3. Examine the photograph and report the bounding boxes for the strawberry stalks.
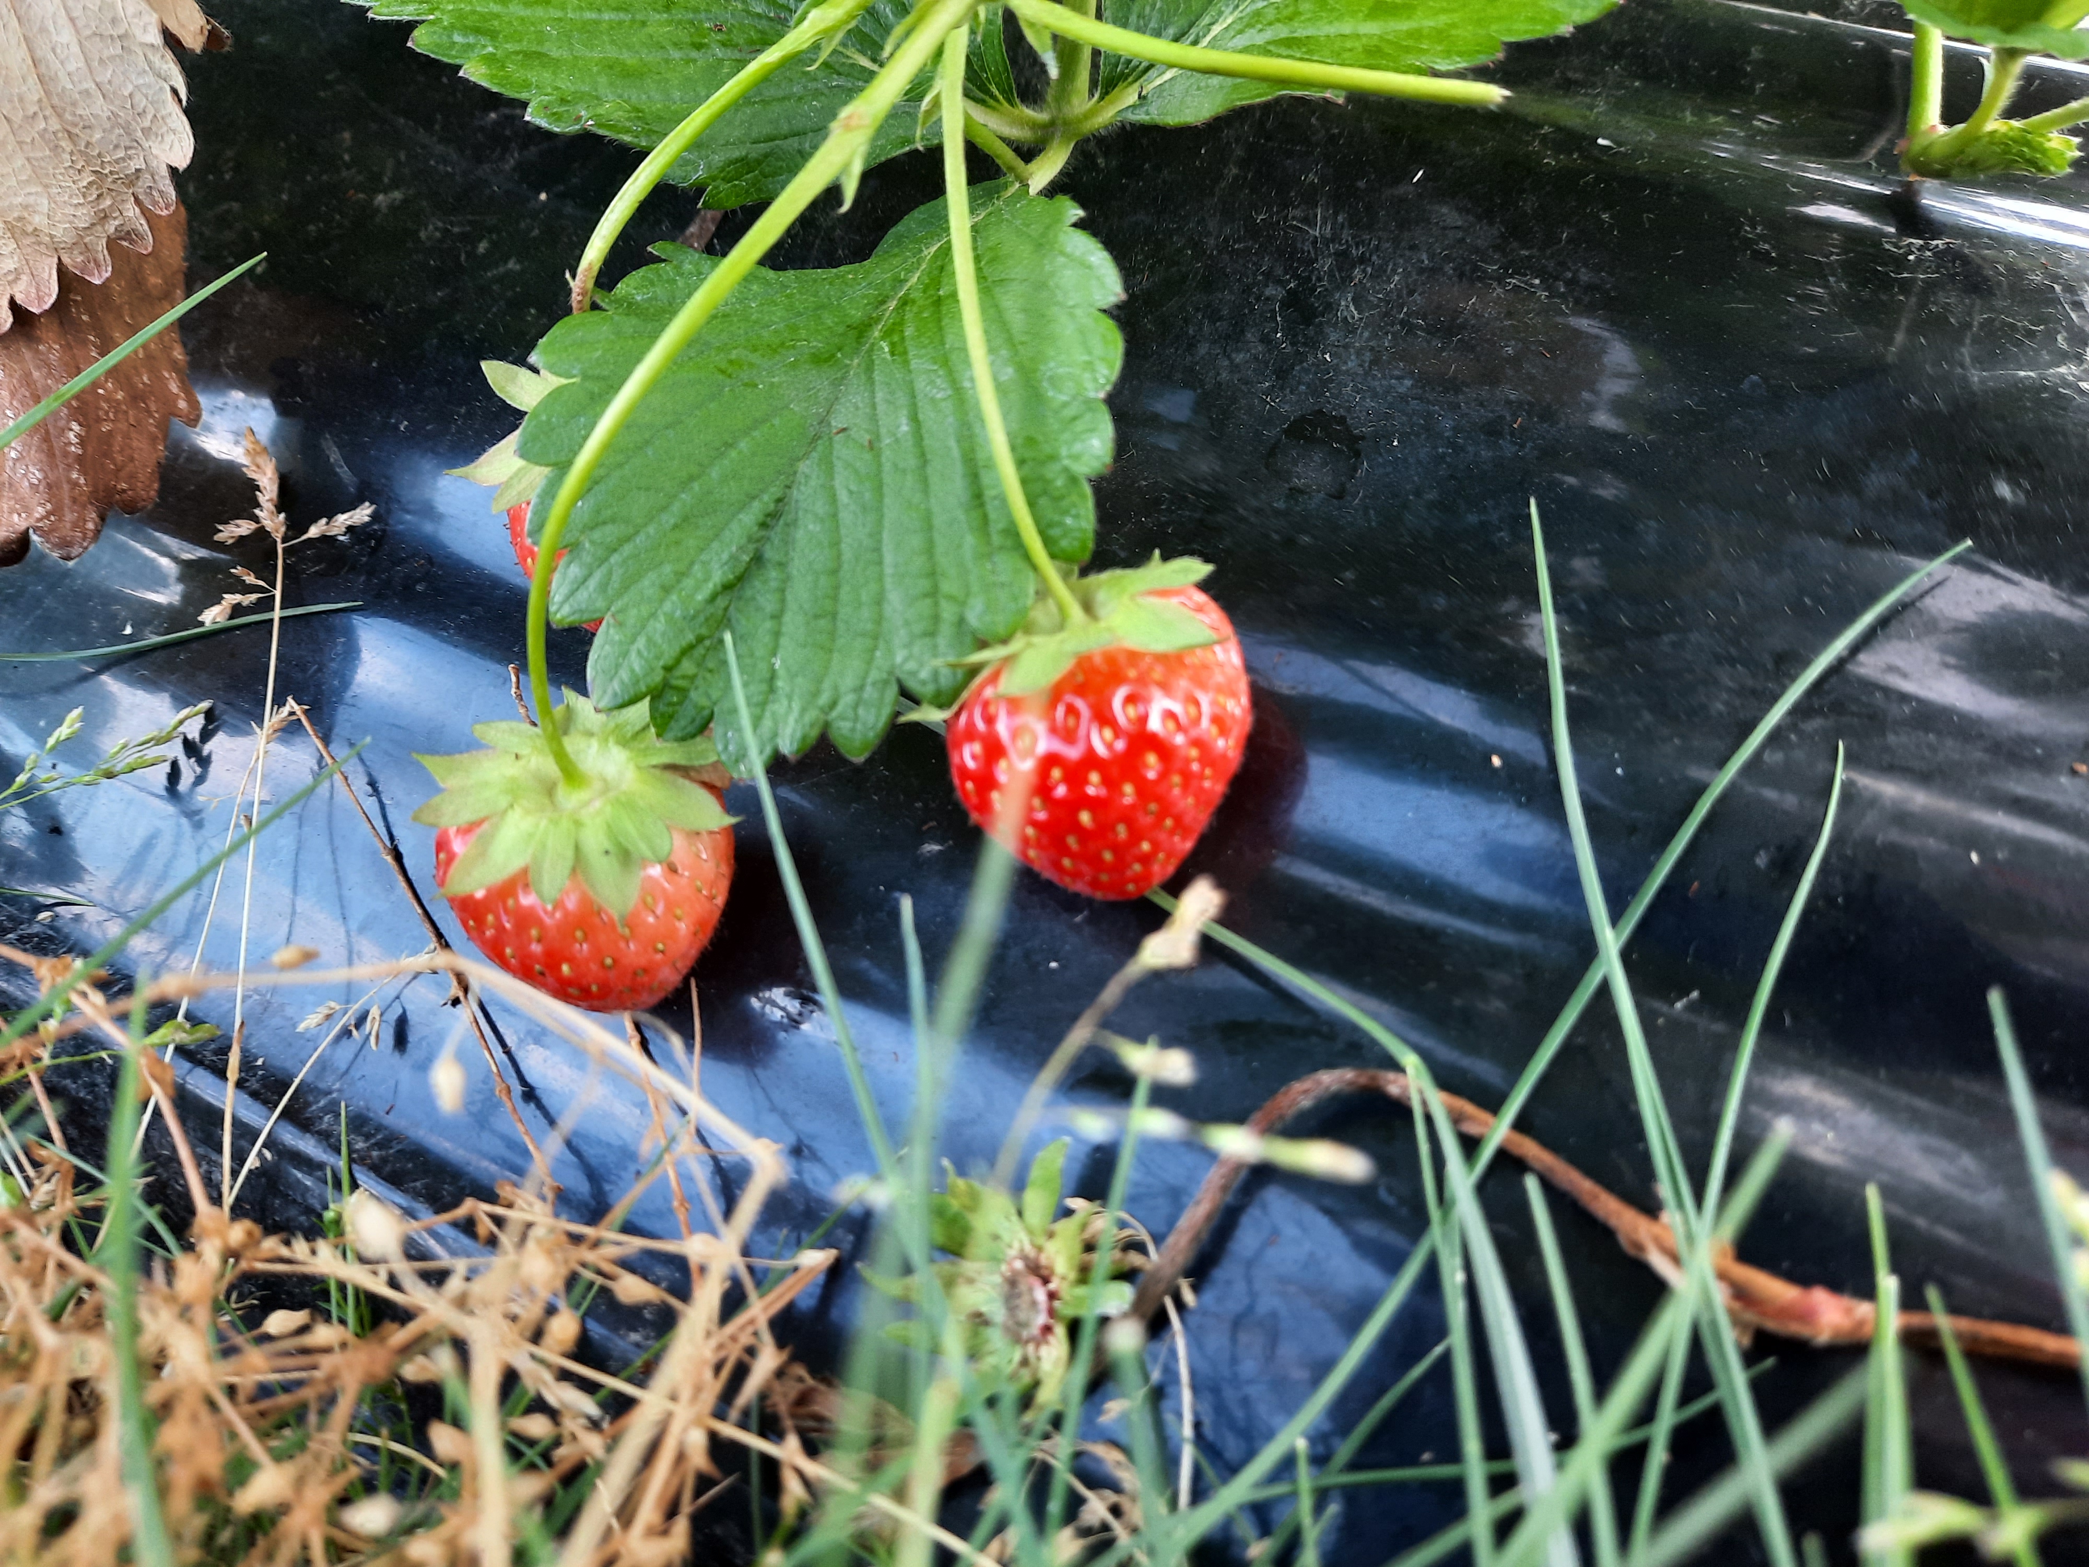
[519,410,629,814]
[935,85,1148,643]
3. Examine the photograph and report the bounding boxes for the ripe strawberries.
[411,724,760,1005]
[952,564,1247,874]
